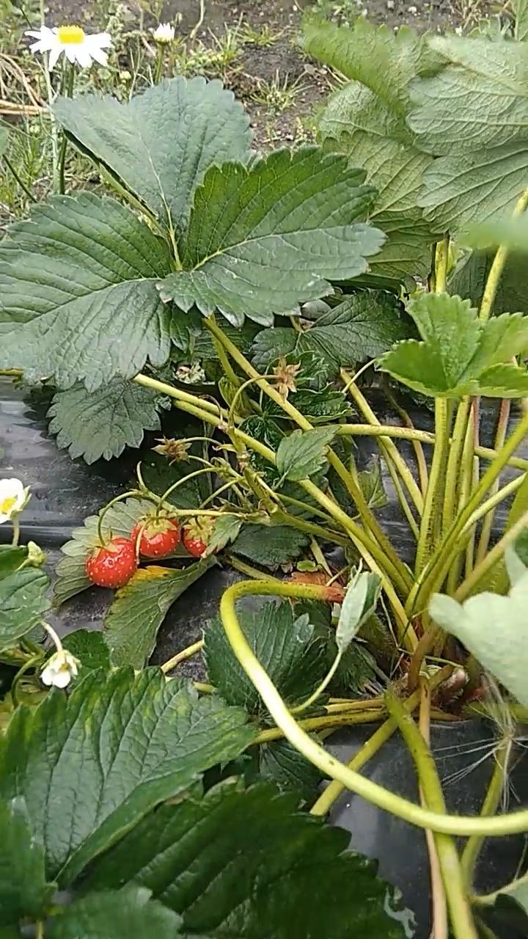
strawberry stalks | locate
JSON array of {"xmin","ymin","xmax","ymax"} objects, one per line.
[
  {"xmin": 186, "ymin": 489, "xmax": 219, "ymax": 532},
  {"xmin": 146, "ymin": 476, "xmax": 170, "ymax": 527},
  {"xmin": 94, "ymin": 486, "xmax": 117, "ymax": 551}
]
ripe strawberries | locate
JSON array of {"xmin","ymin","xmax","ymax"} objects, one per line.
[
  {"xmin": 85, "ymin": 536, "xmax": 134, "ymax": 591},
  {"xmin": 182, "ymin": 515, "xmax": 221, "ymax": 560},
  {"xmin": 136, "ymin": 518, "xmax": 180, "ymax": 560}
]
